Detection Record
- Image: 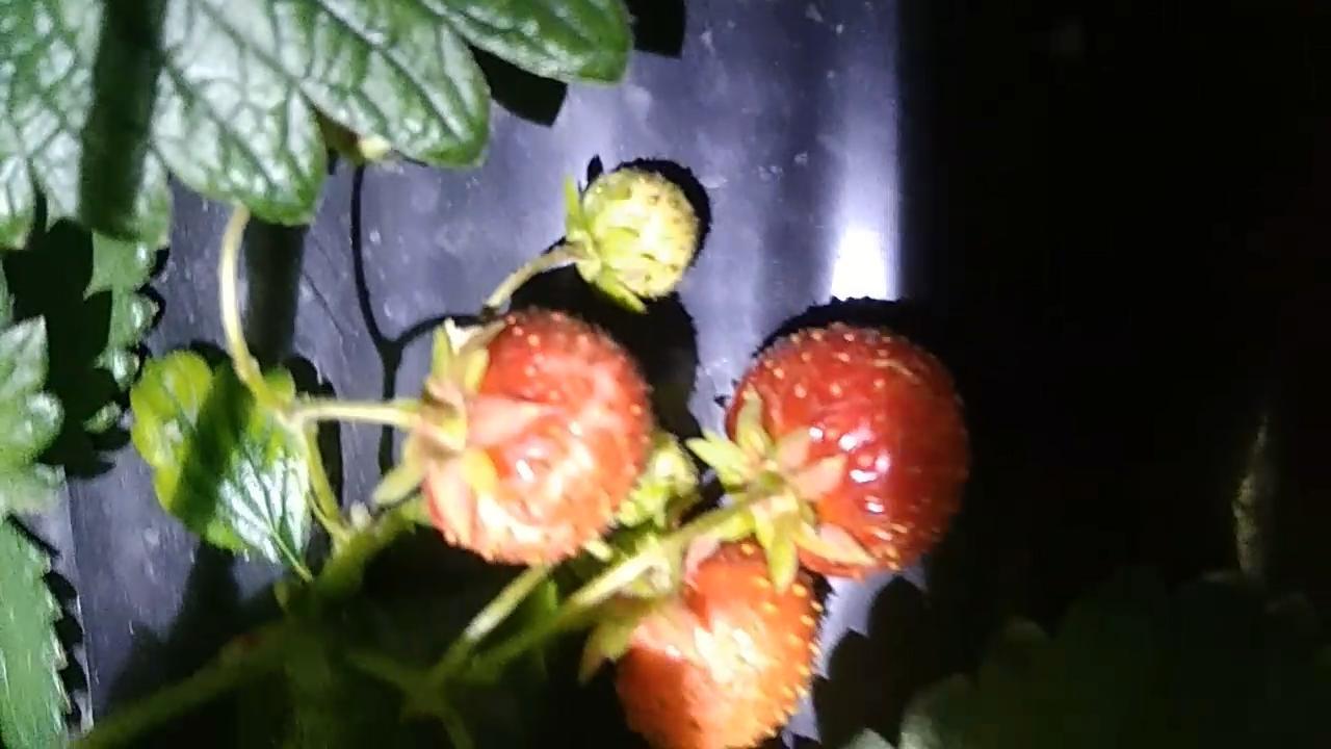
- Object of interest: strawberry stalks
[483,222,598,285]
[281,386,493,455]
[630,446,866,585]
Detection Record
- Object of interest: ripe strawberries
[598,541,825,749]
[726,314,969,572]
[402,301,664,560]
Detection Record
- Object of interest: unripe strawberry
[554,151,713,298]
